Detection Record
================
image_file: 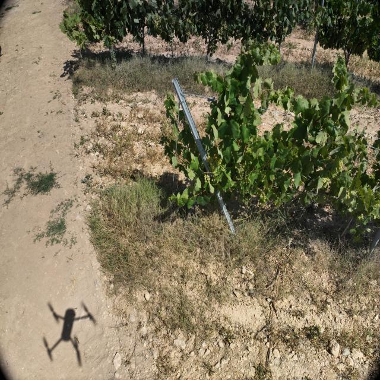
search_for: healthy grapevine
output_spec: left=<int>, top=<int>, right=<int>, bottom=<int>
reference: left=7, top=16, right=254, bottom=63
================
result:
left=152, top=42, right=357, bottom=239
